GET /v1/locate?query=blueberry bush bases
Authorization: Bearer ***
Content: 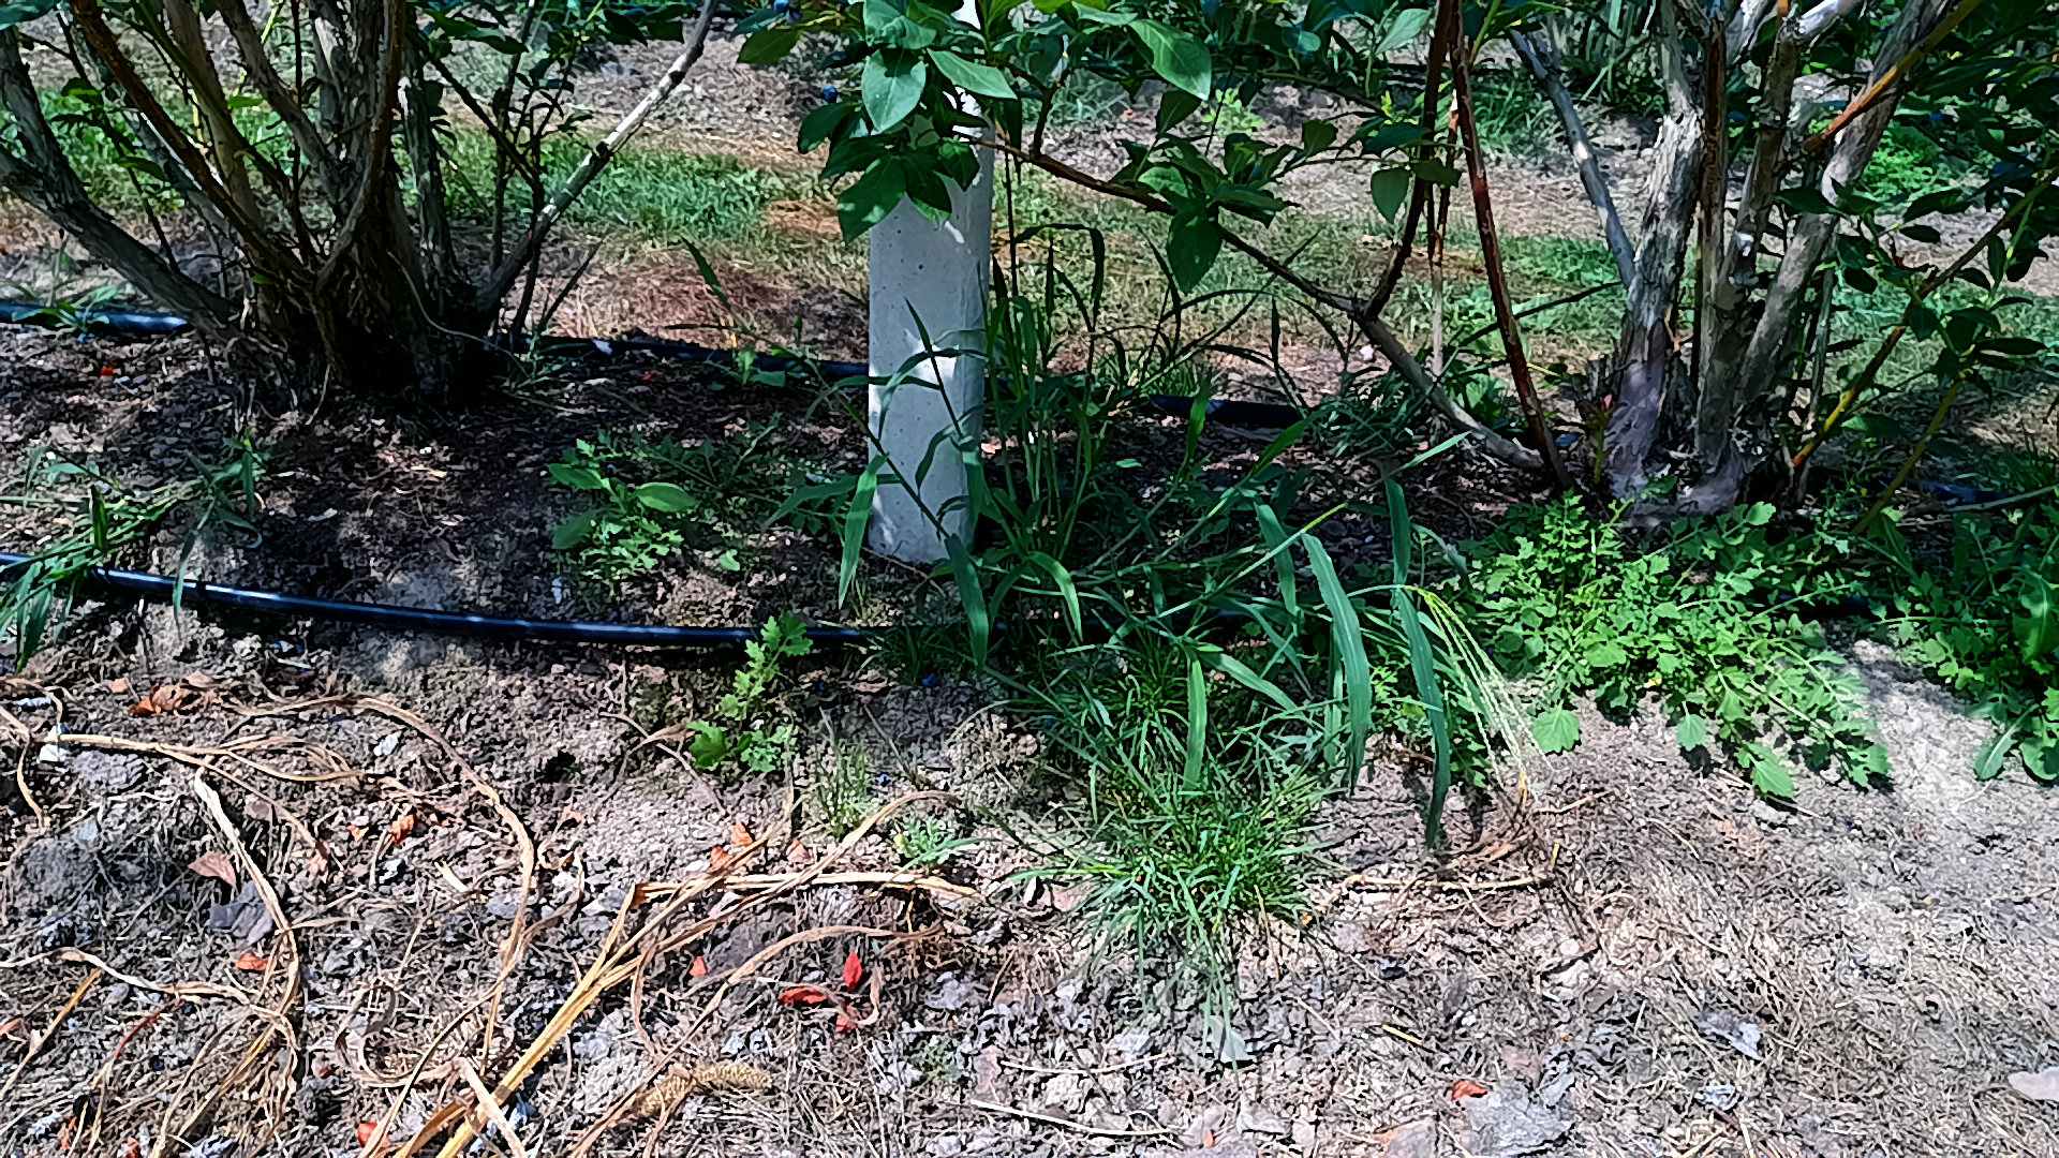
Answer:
[1439,233,1962,650]
[78,161,634,491]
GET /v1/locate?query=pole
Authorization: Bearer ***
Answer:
[847,173,999,589]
